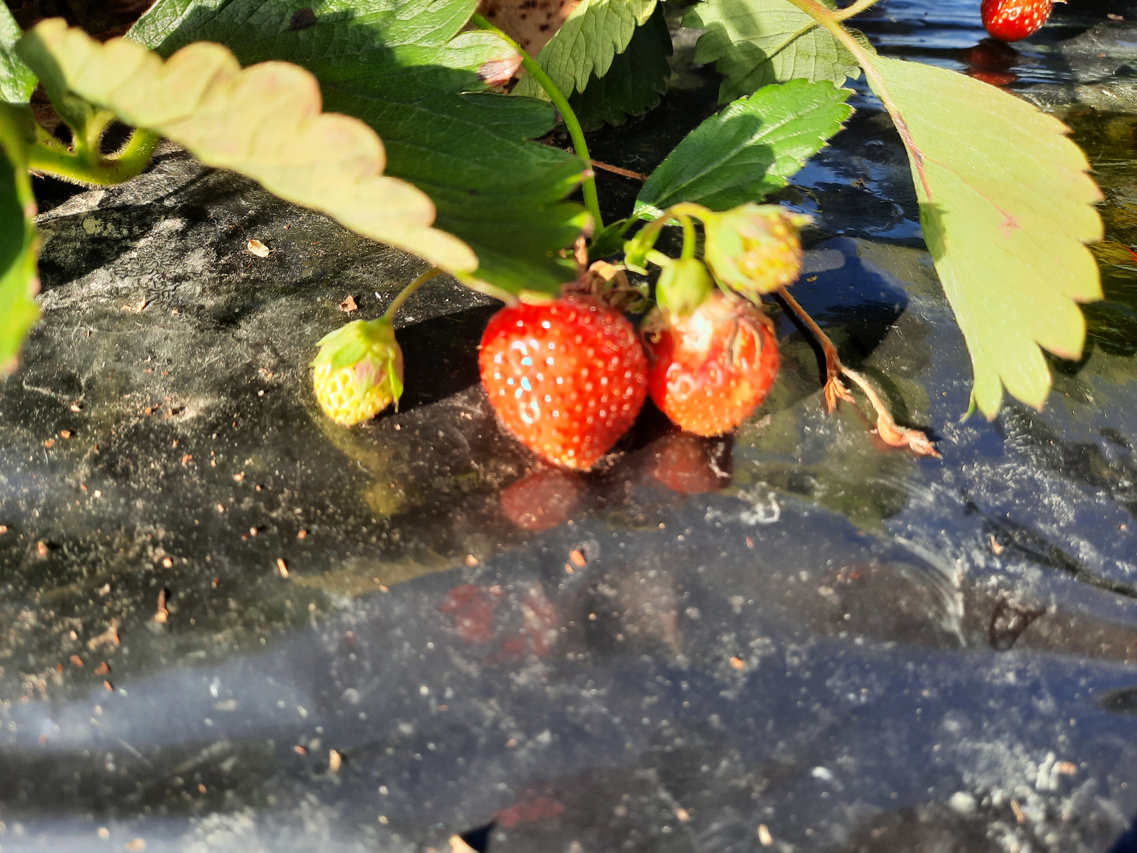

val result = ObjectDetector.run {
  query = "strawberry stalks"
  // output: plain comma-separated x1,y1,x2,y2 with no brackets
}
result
680,208,722,340
362,258,450,352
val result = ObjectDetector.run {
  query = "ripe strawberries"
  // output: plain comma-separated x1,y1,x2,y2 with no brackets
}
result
647,281,771,425
977,0,1057,42
472,305,649,471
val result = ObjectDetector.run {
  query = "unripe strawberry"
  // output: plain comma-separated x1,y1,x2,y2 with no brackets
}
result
311,328,399,430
